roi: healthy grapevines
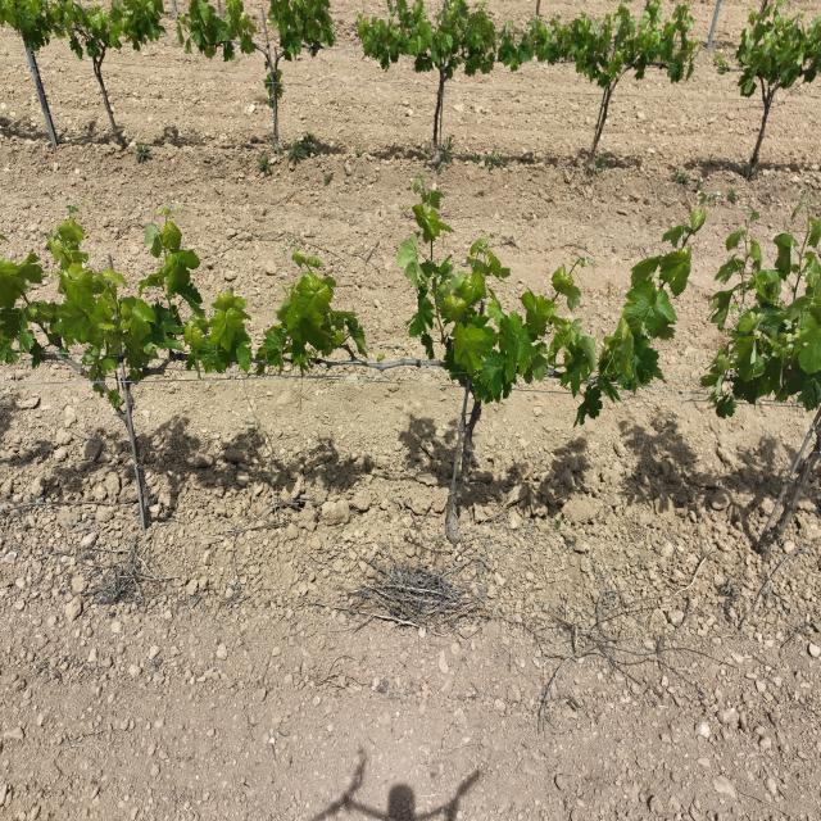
[700,189,821,579]
[267,173,707,569]
[0,208,309,557]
